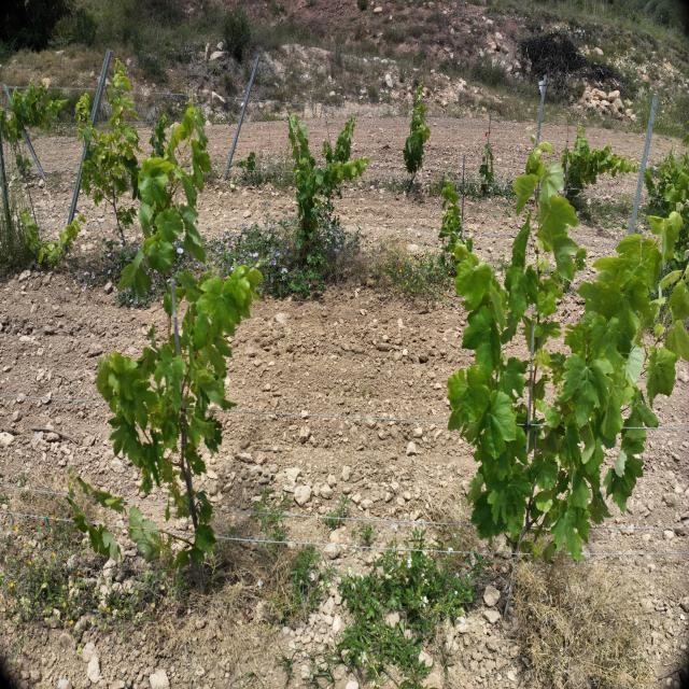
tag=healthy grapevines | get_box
[87,155,273,611]
[435,192,689,650]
